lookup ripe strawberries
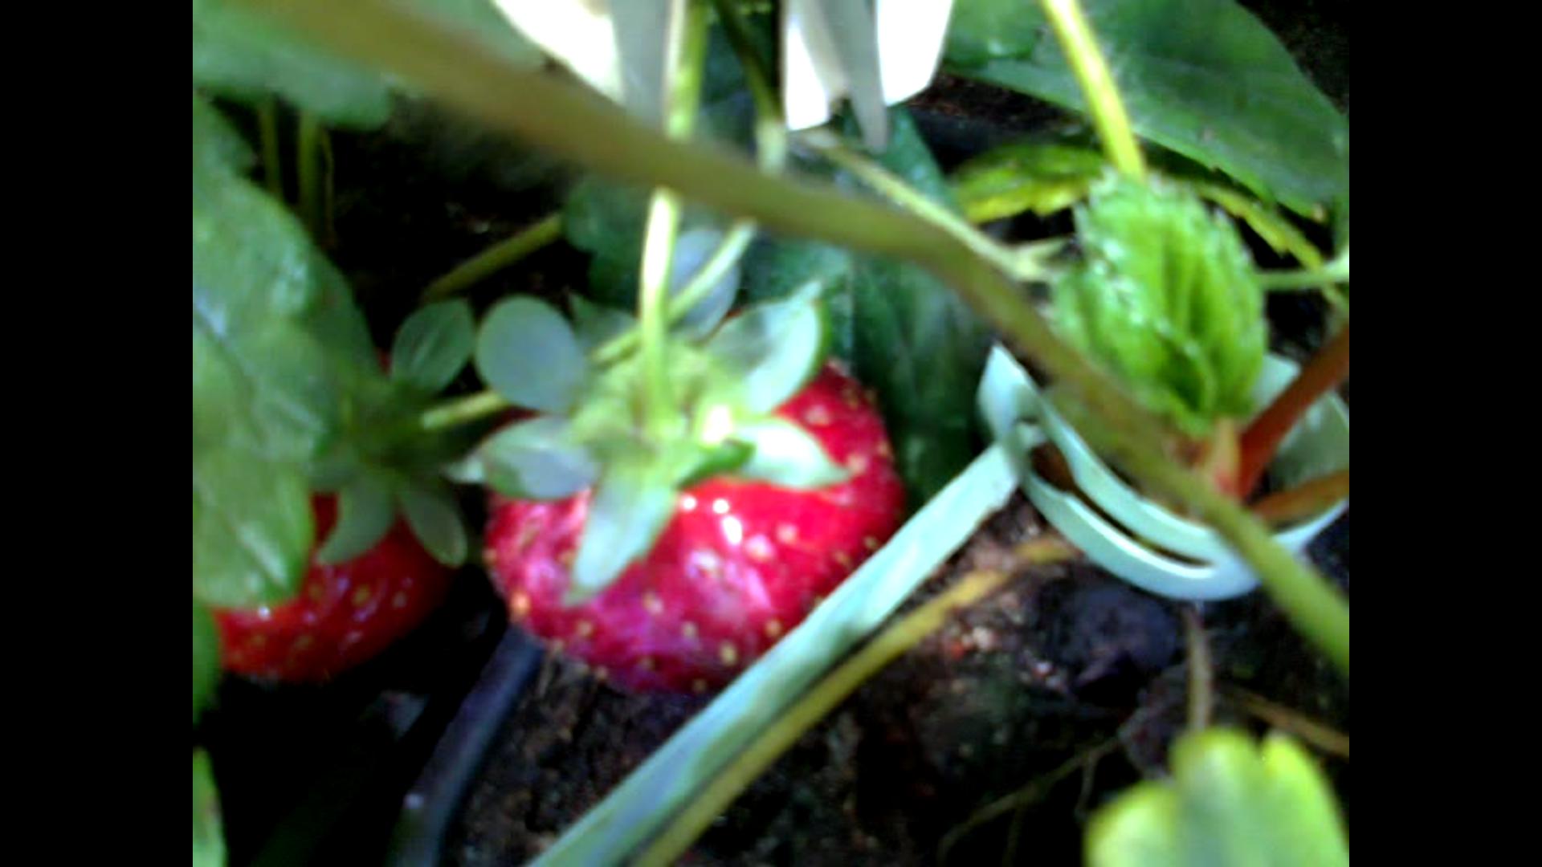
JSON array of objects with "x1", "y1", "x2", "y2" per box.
[
  {"x1": 195, "y1": 362, "x2": 461, "y2": 685},
  {"x1": 487, "y1": 314, "x2": 914, "y2": 718}
]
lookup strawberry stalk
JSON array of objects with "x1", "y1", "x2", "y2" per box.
[{"x1": 630, "y1": 192, "x2": 698, "y2": 484}]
